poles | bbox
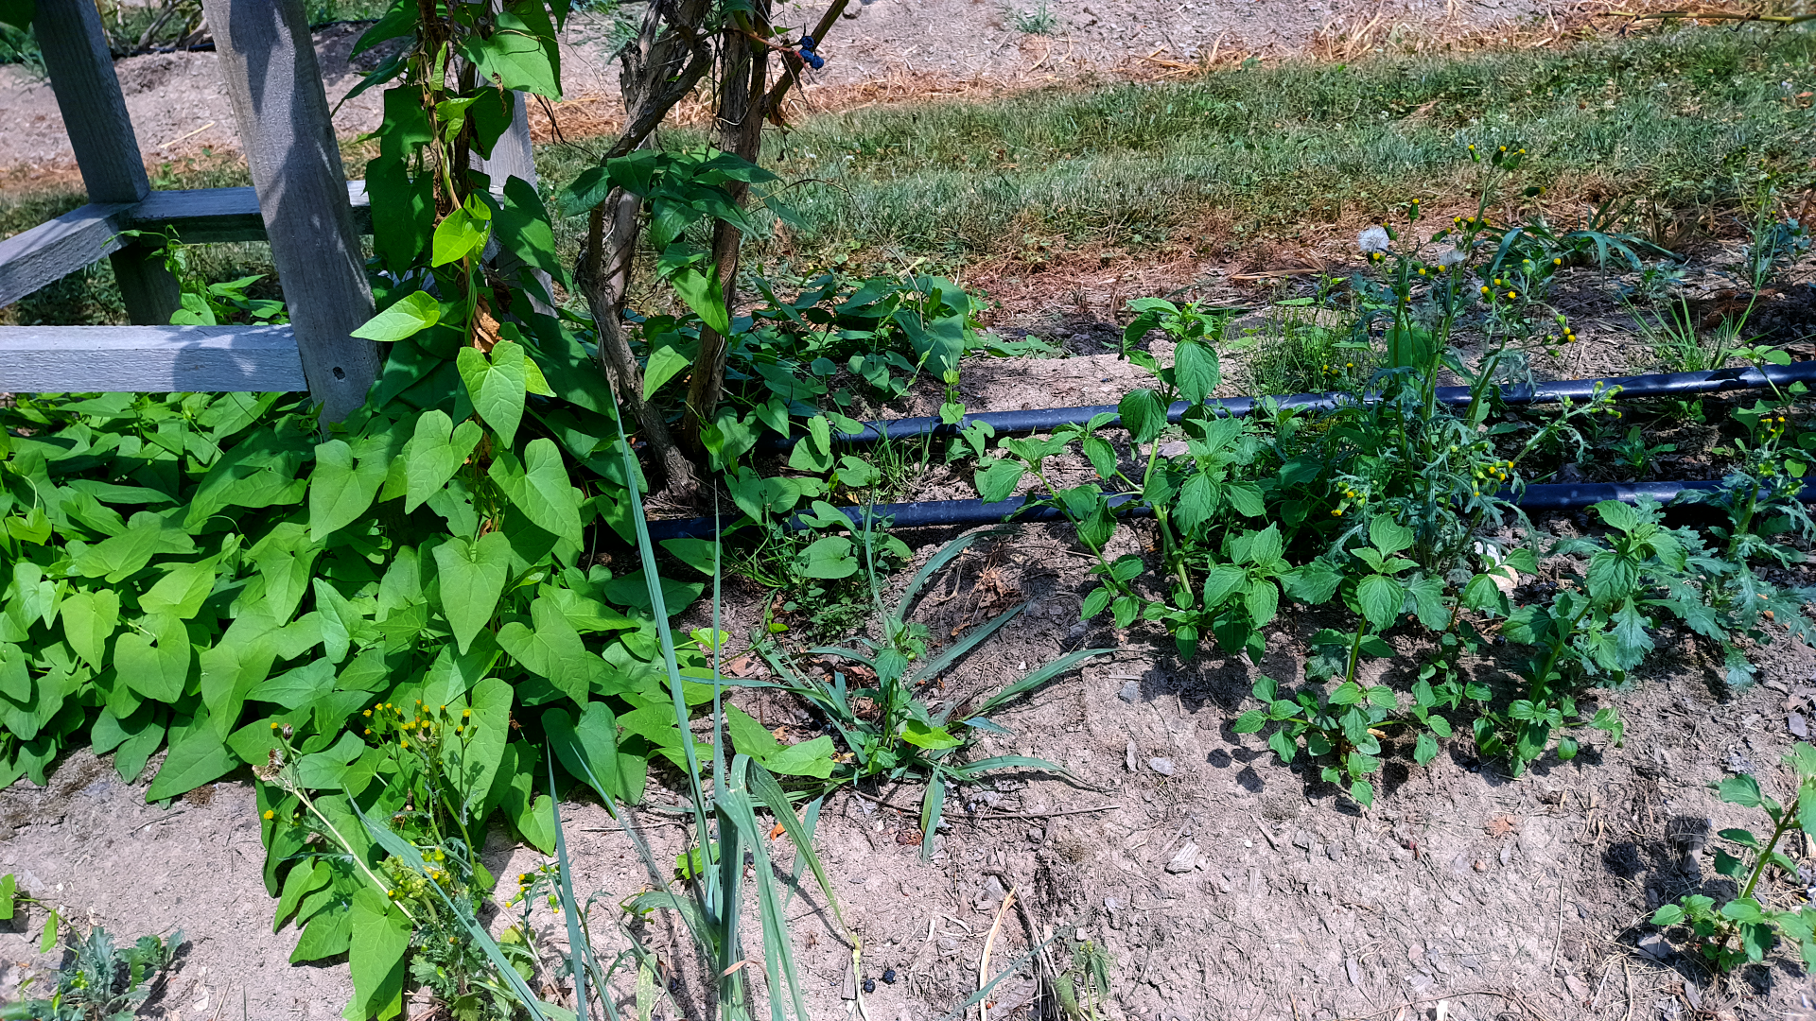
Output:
[21,0,205,344]
[206,0,410,447]
[463,0,556,338]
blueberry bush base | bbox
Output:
[431,232,808,656]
